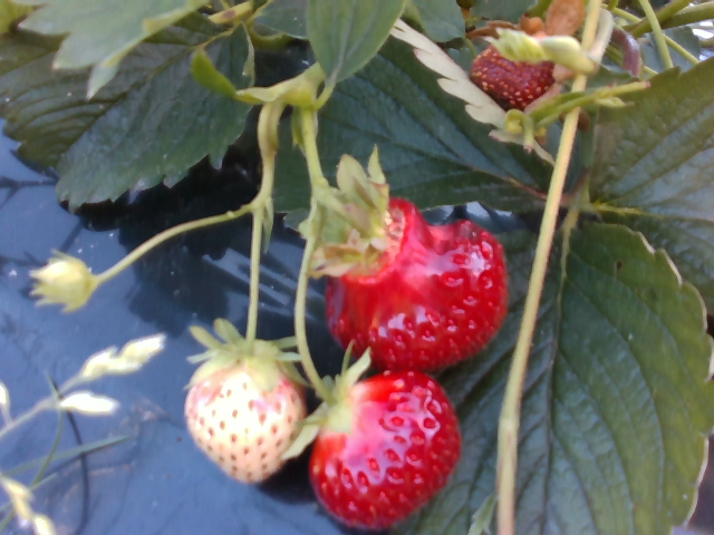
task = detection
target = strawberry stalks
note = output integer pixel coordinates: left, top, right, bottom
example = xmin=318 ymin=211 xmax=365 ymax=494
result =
xmin=293 ymin=251 xmax=354 ymax=426
xmin=224 ymin=207 xmax=268 ymax=386
xmin=312 ymin=173 xmax=398 ymax=252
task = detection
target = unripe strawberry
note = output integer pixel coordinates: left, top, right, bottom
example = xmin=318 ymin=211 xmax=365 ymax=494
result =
xmin=183 ymin=346 xmax=306 ymax=485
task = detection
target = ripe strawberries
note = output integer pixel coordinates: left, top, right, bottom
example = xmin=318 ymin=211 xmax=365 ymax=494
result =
xmin=327 ymin=195 xmax=506 ymax=365
xmin=309 ymin=375 xmax=460 ymax=522
xmin=463 ymin=41 xmax=561 ymax=107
